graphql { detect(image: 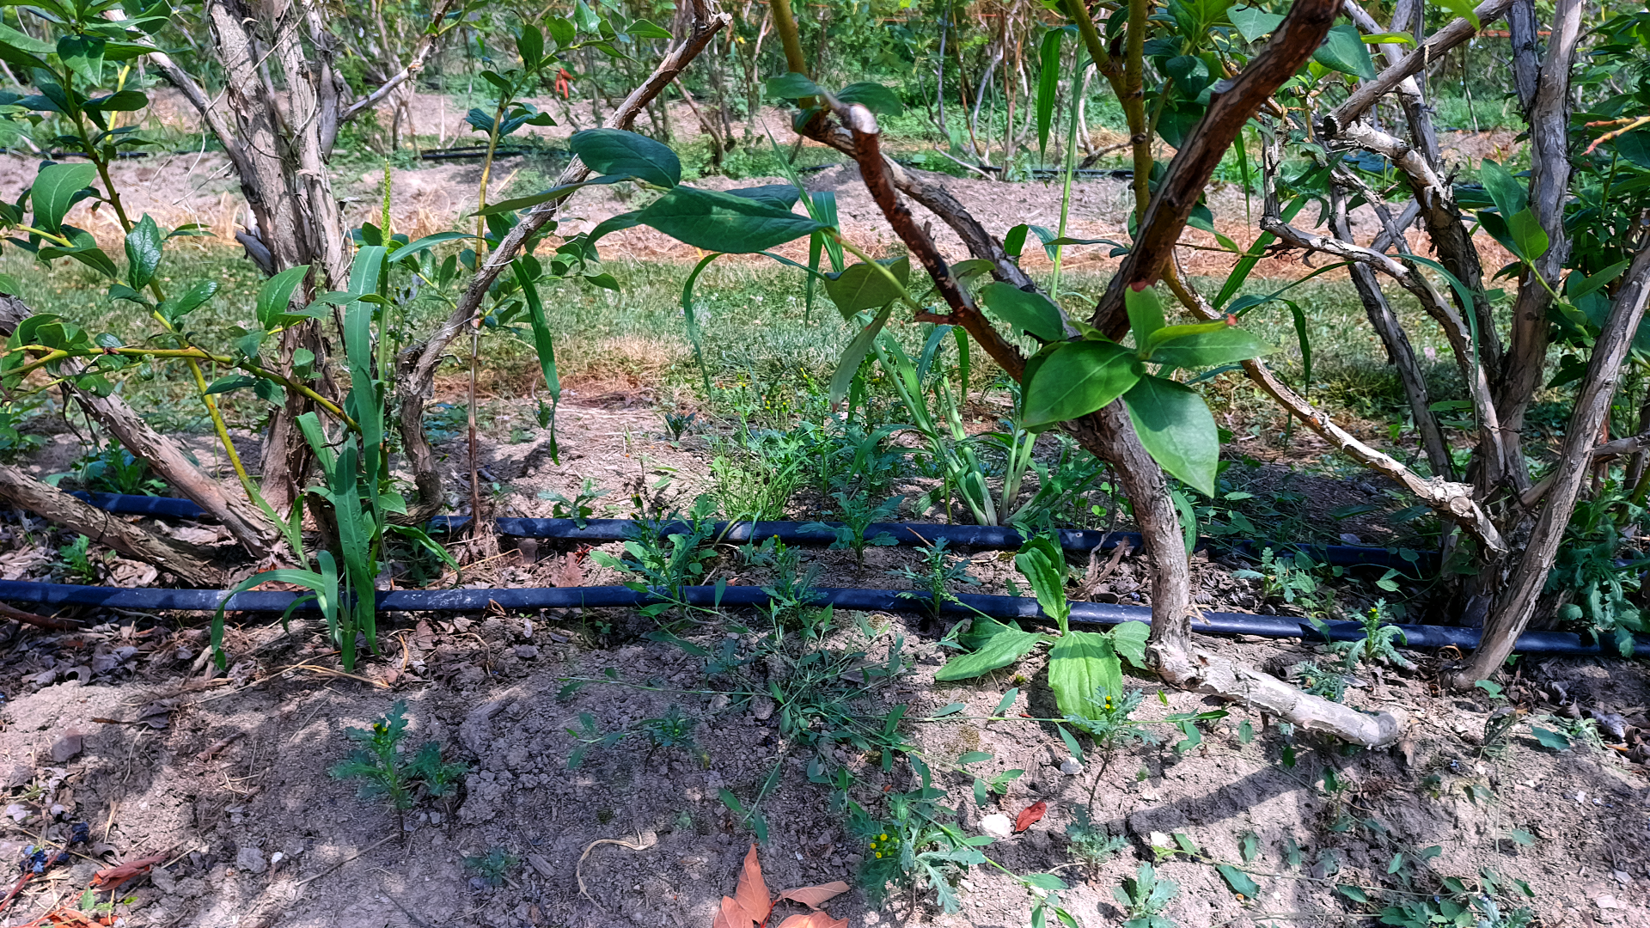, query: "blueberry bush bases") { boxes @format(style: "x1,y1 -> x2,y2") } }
640,101 -> 818,193
912,111 -> 1090,203
1189,369 -> 1650,788
15,269 -> 587,735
